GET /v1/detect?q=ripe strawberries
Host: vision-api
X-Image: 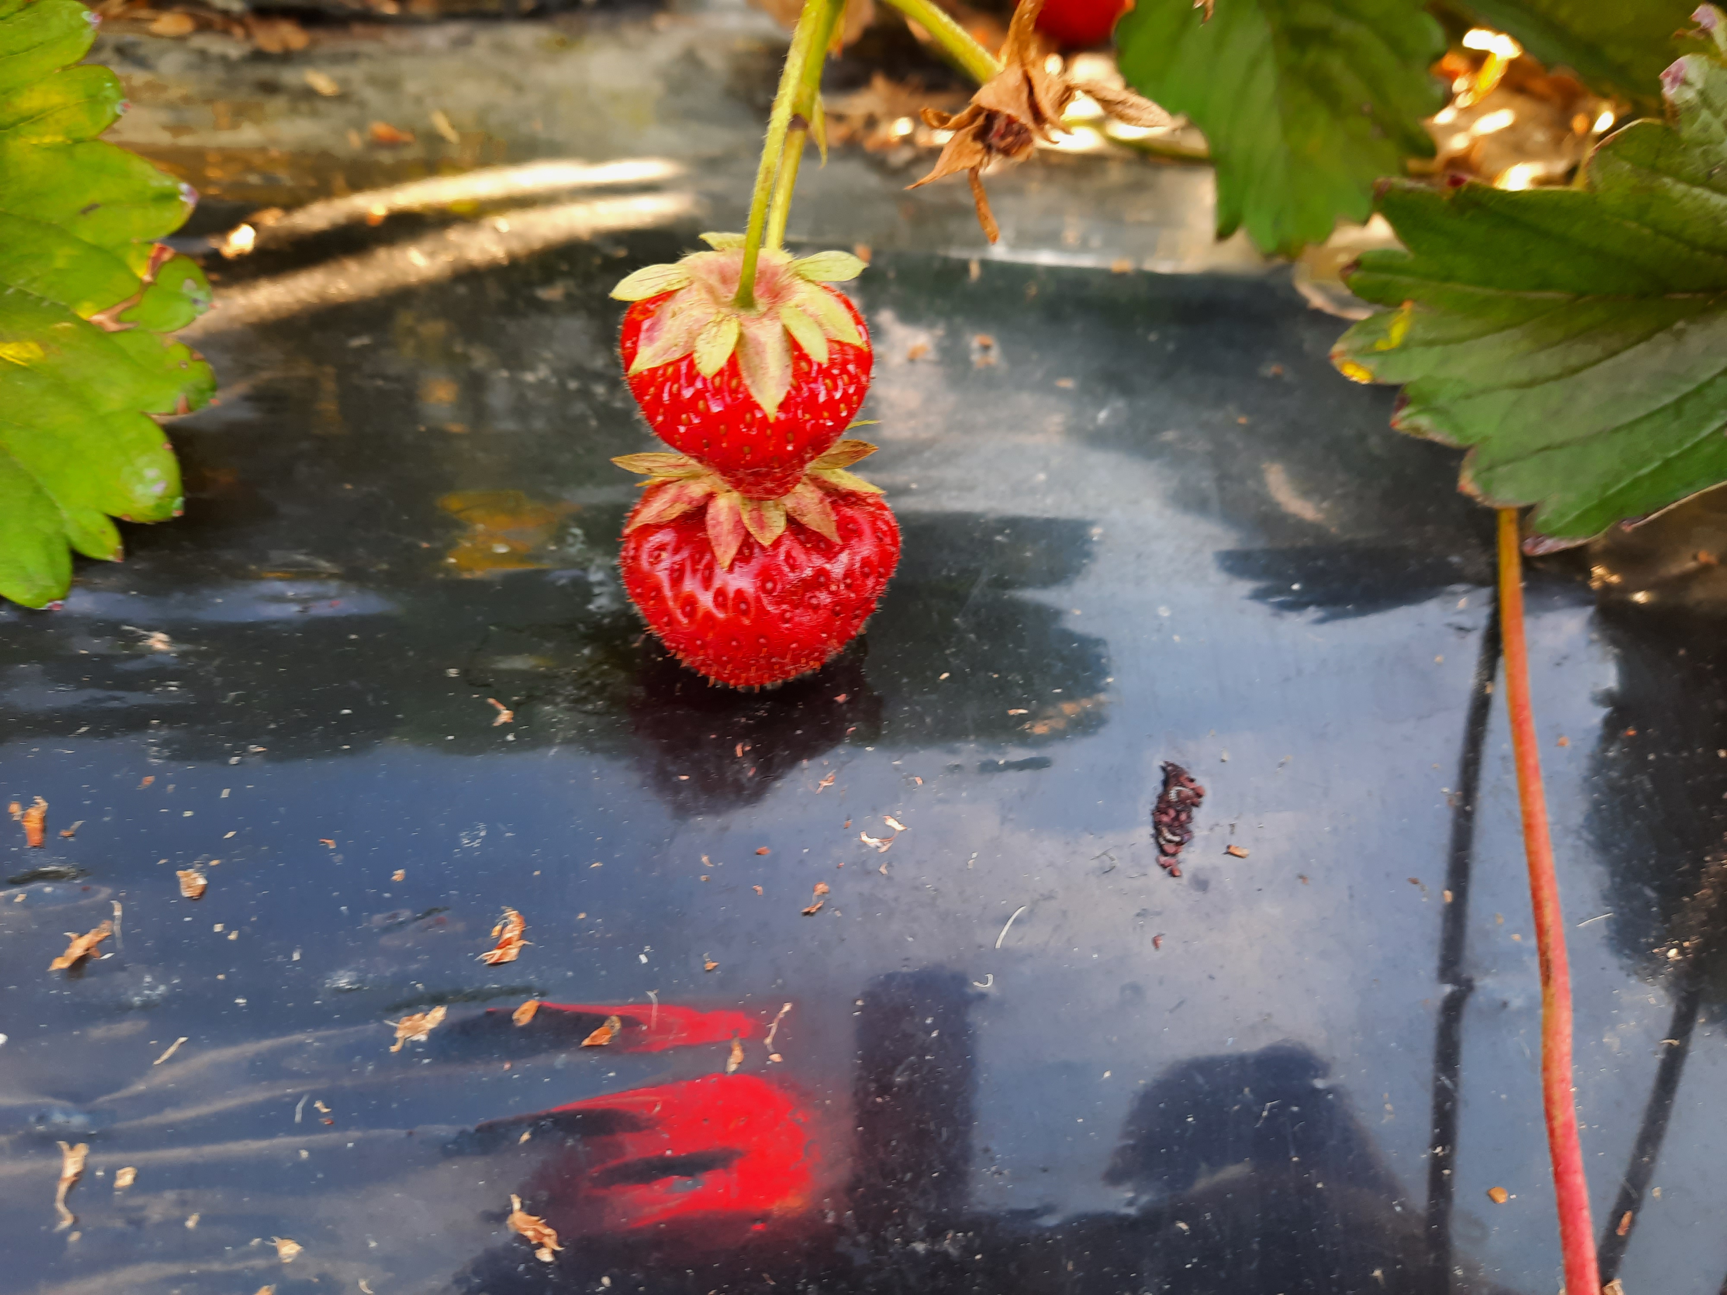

[642,237,840,453]
[634,466,886,679]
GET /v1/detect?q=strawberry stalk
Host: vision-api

[727,0,819,336]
